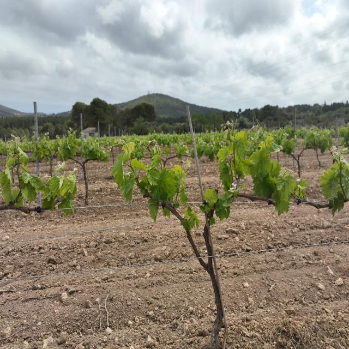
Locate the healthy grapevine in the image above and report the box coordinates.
[115,146,348,349]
